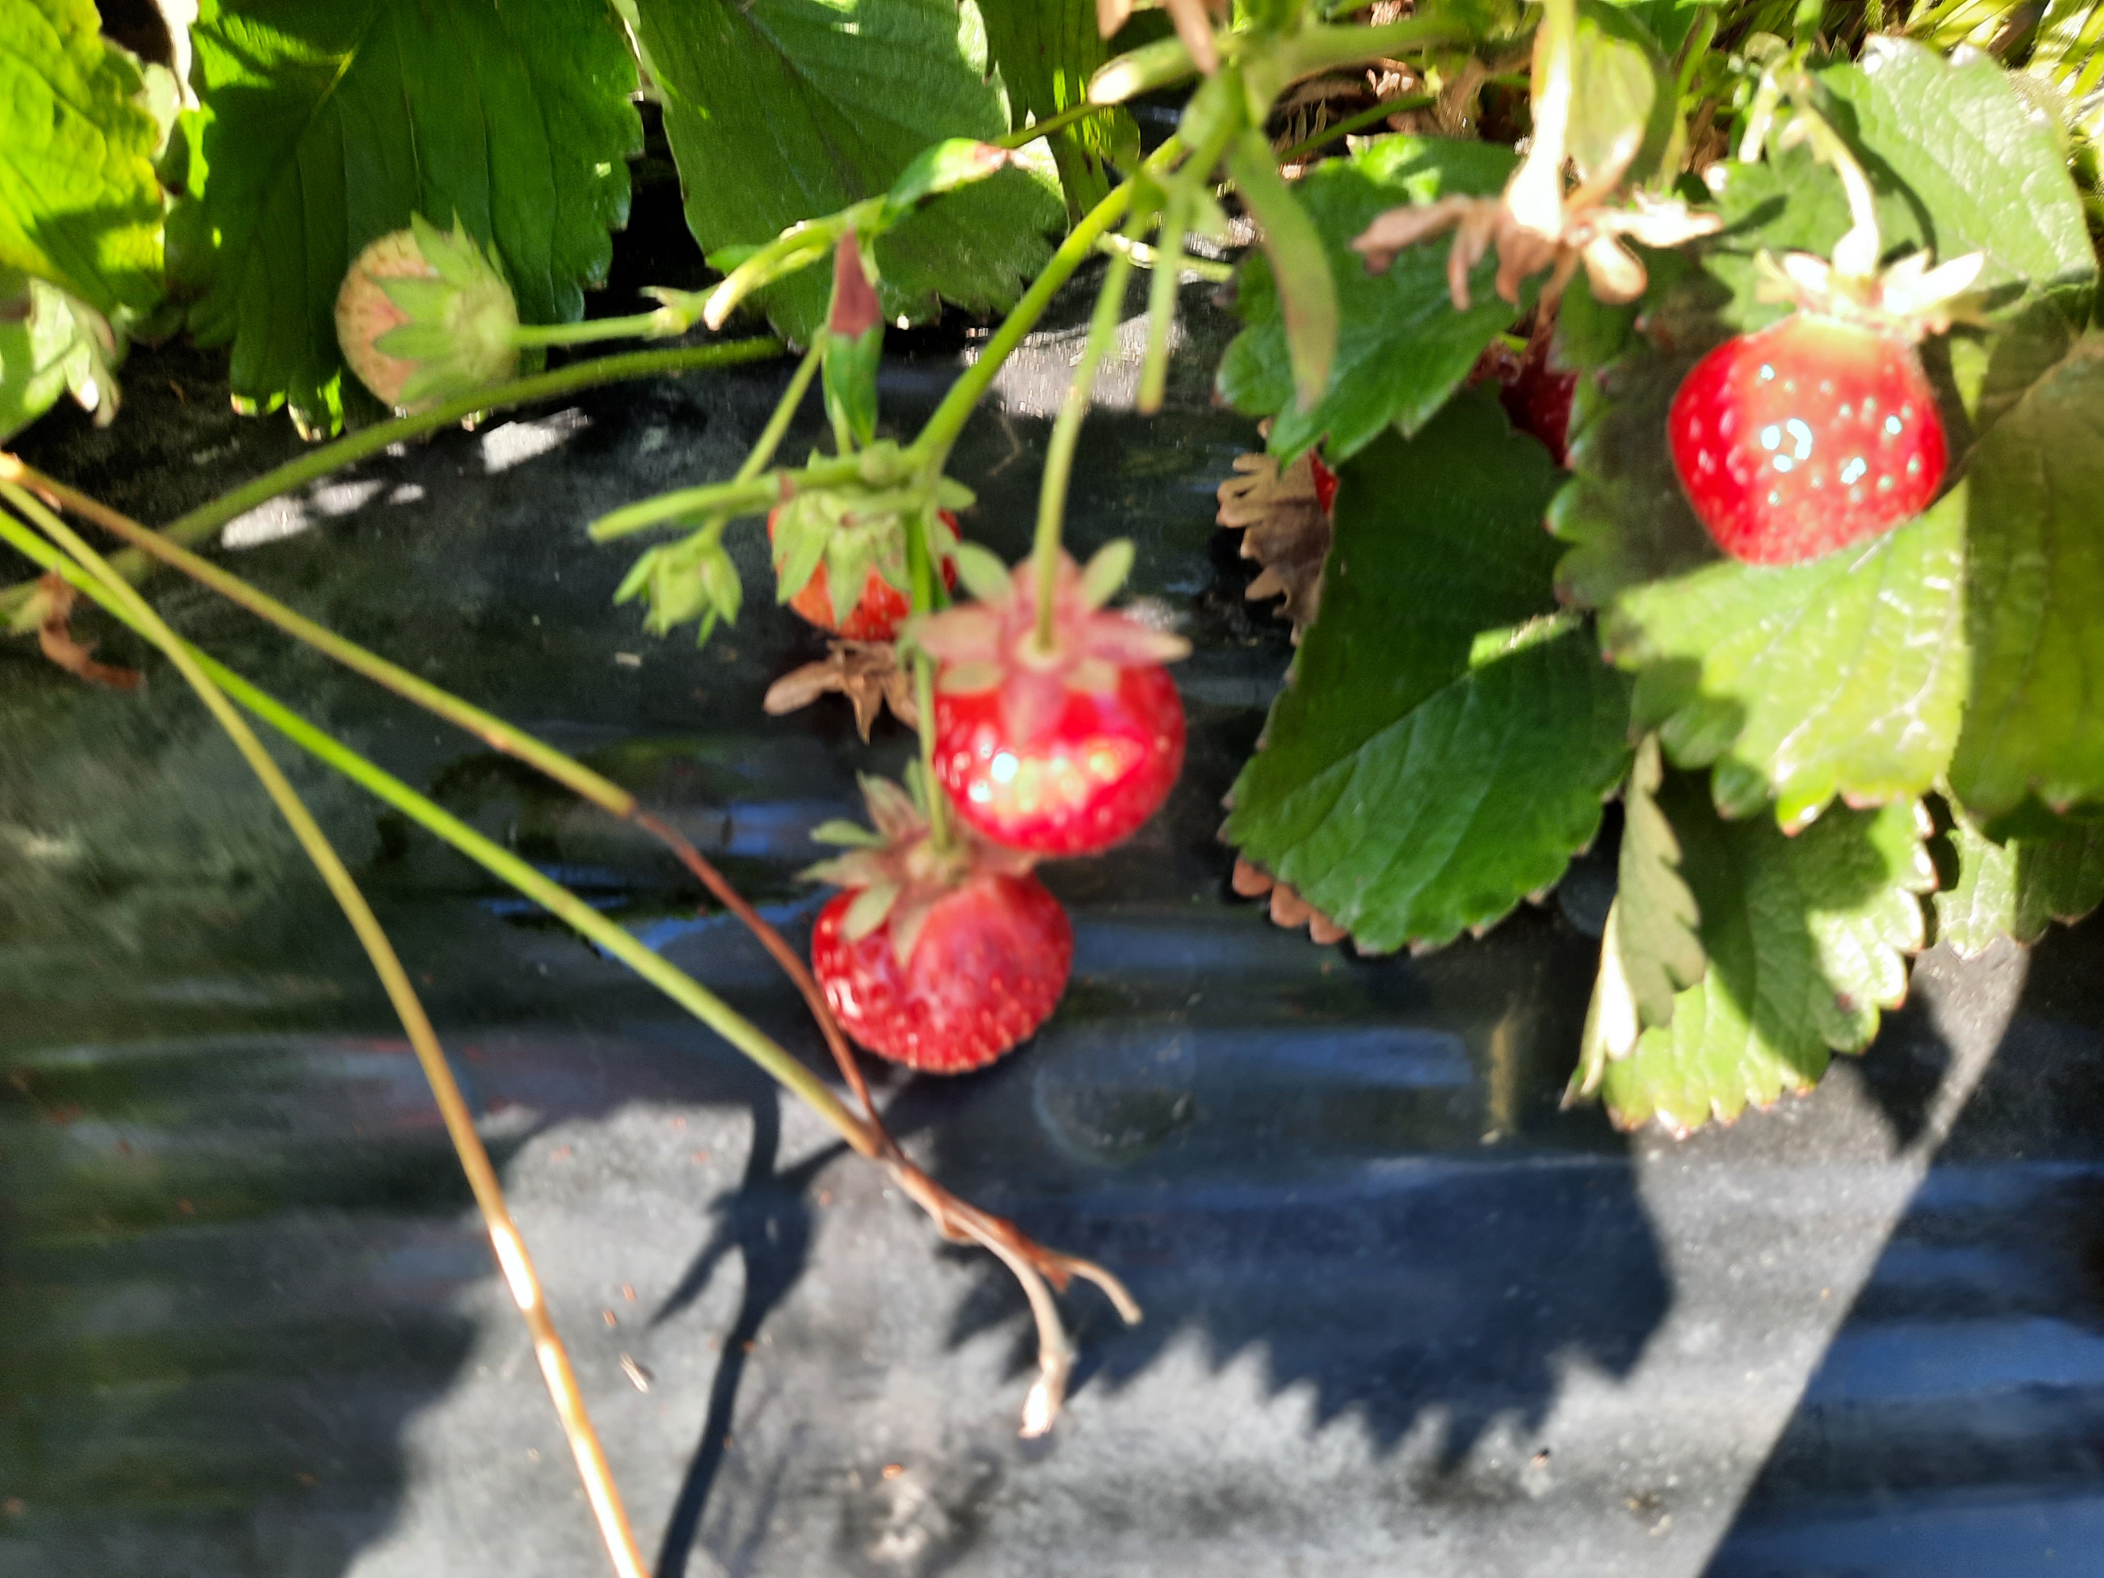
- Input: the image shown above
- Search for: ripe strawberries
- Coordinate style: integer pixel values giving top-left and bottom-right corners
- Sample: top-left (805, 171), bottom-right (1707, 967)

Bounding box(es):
top-left (1674, 314), bottom-right (1953, 551)
top-left (924, 585), bottom-right (1178, 853)
top-left (815, 853), bottom-right (1069, 1070)
top-left (786, 498), bottom-right (955, 630)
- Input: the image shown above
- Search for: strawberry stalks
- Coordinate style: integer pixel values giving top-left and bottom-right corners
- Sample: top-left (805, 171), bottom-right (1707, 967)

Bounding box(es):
top-left (1771, 89), bottom-right (1893, 365)
top-left (909, 660), bottom-right (1006, 913)
top-left (988, 299), bottom-right (1124, 684)
top-left (818, 358), bottom-right (985, 569)
top-left (453, 291), bottom-right (749, 358)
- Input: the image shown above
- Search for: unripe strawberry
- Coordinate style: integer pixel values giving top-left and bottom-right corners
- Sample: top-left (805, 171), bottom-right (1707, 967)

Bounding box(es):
top-left (346, 235), bottom-right (519, 415)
